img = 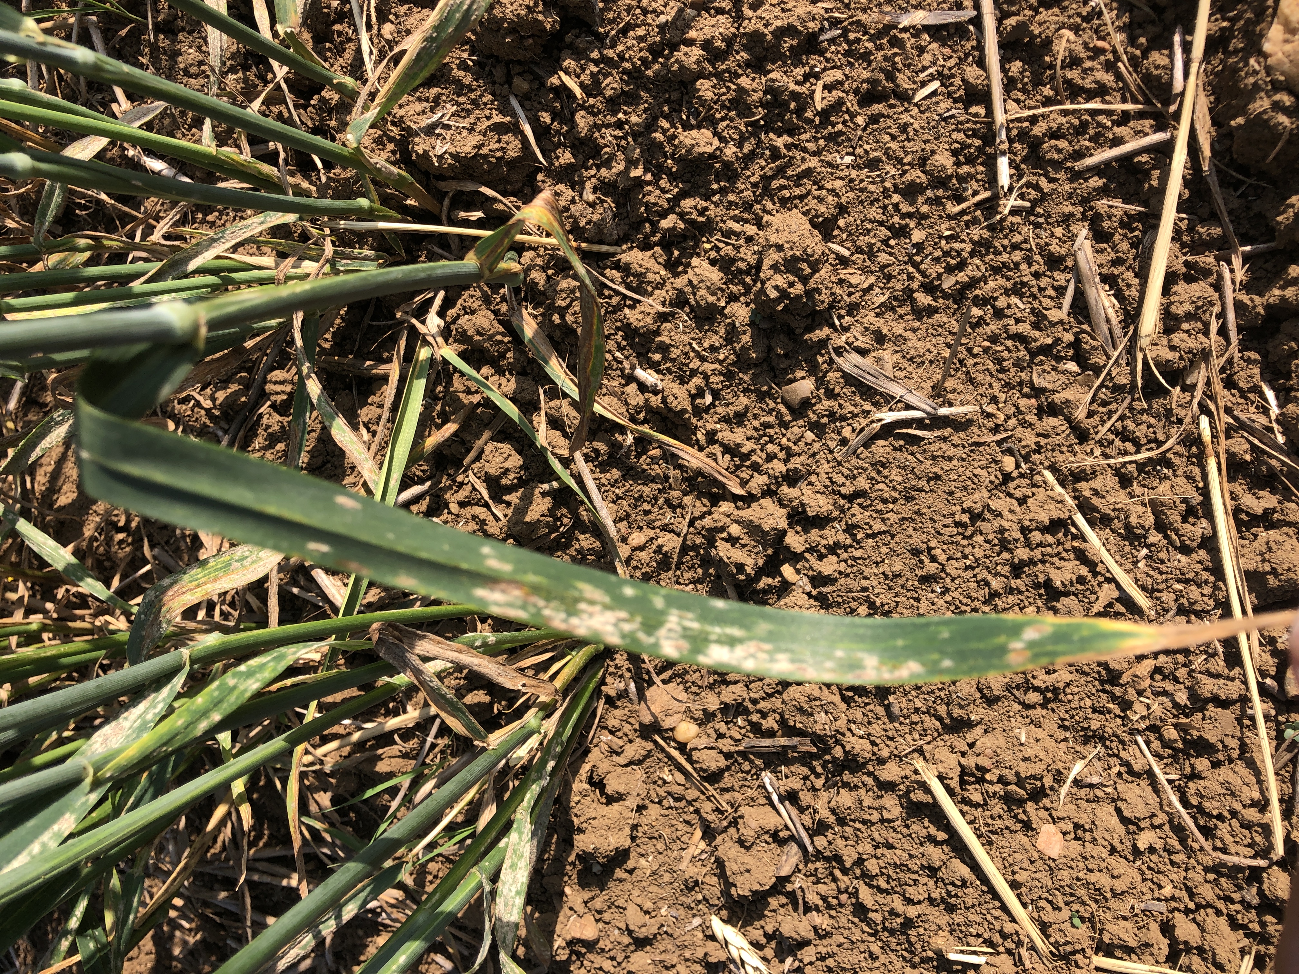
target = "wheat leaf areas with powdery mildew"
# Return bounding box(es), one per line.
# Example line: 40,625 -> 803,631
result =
375,0 -> 471,115
140,625 -> 319,756
49,672 -> 194,779
11,790 -> 110,865
468,761 -> 599,958
246,462 -> 1157,707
